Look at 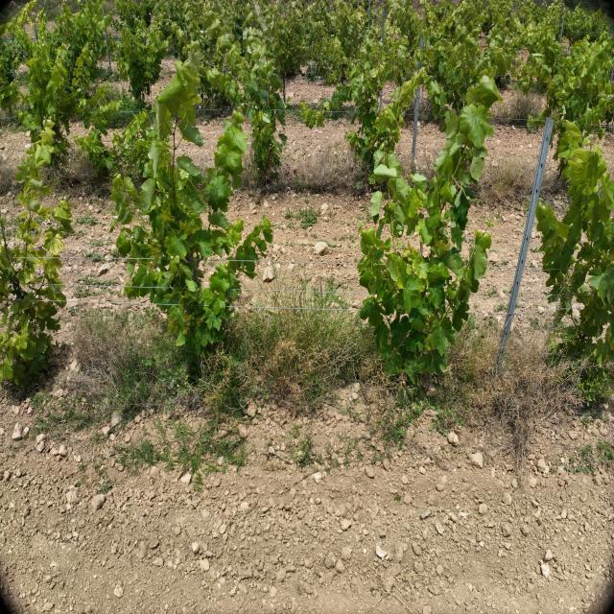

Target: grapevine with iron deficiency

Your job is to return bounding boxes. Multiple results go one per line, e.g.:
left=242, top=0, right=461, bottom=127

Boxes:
left=0, top=141, right=77, bottom=395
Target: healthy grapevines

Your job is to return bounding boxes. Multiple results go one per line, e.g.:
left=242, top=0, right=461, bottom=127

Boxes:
left=104, top=67, right=283, bottom=398
left=522, top=126, right=614, bottom=414
left=353, top=88, right=503, bottom=419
